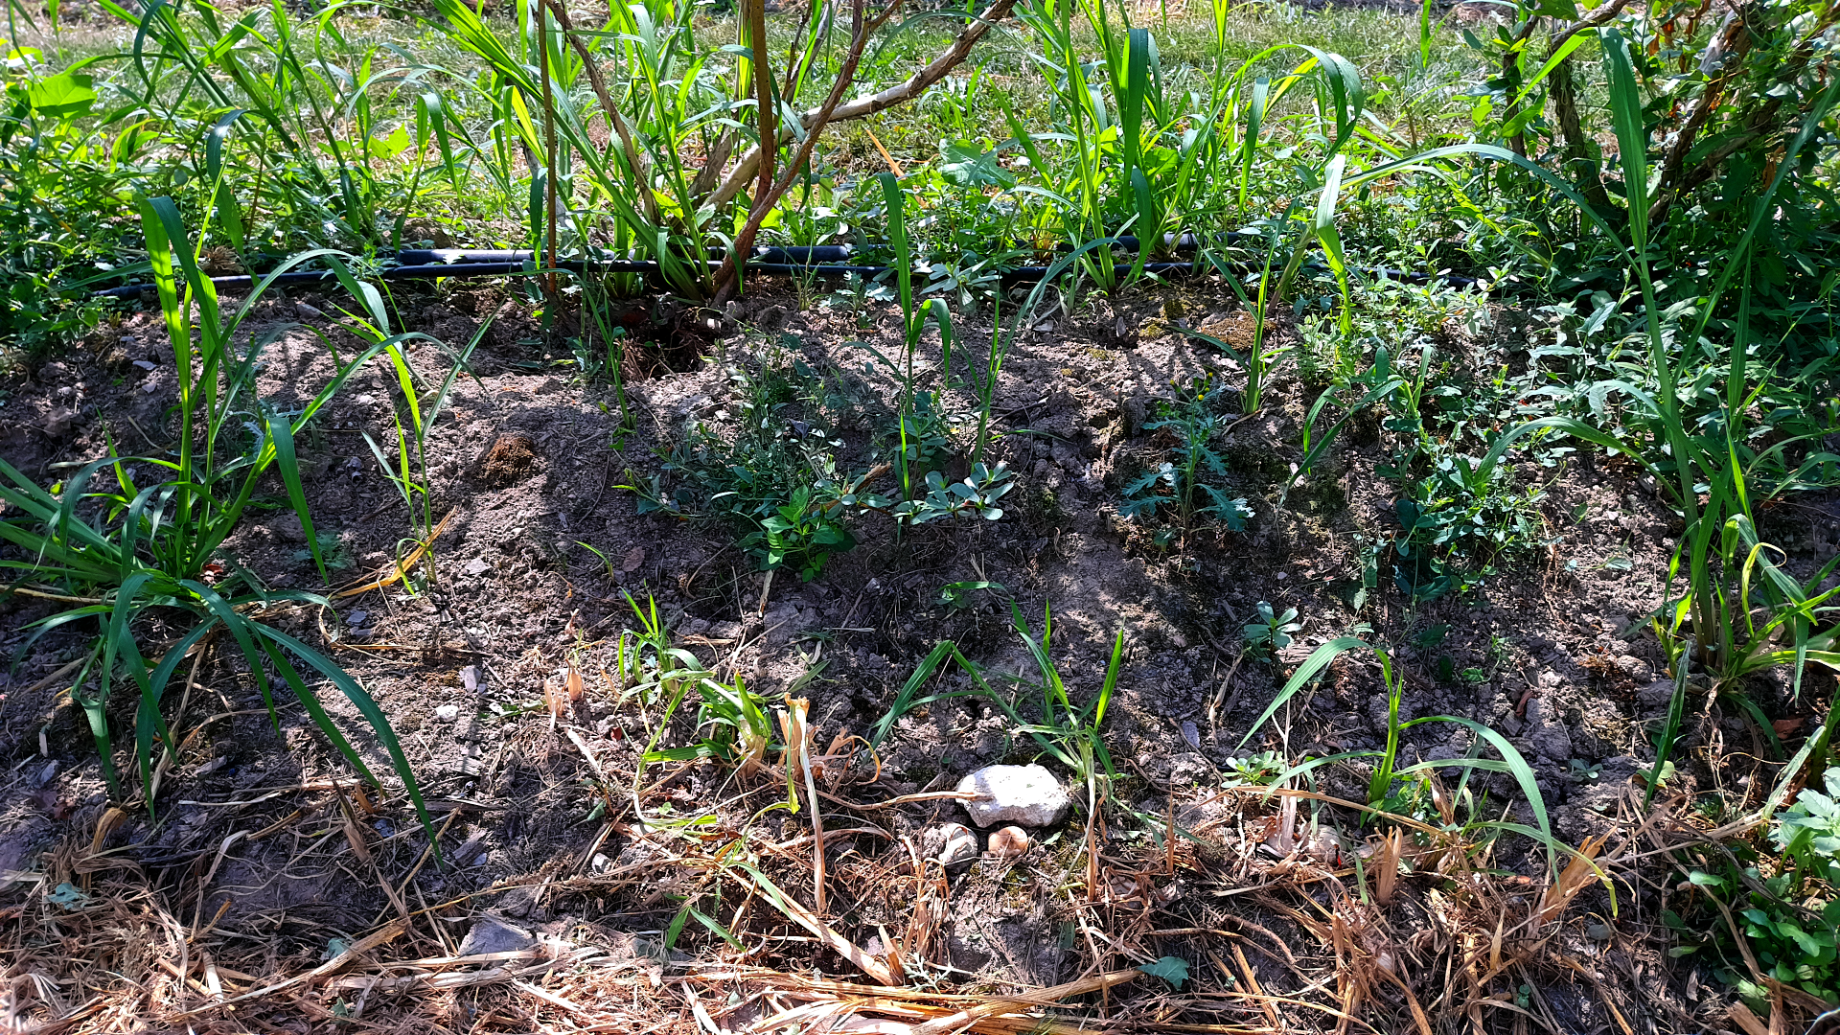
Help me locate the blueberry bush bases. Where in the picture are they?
[1511,96,1817,366]
[517,135,838,388]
